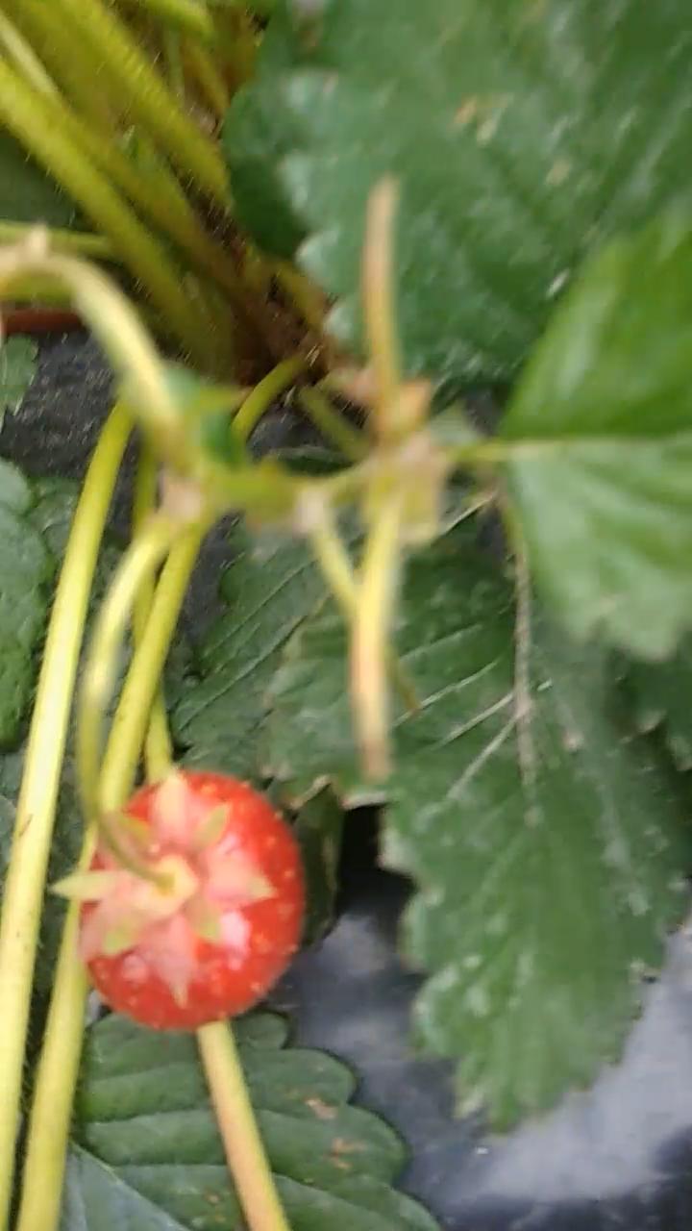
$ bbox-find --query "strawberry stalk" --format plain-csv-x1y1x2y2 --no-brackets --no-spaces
66,736,189,921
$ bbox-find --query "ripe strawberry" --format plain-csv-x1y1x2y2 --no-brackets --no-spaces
74,757,335,1019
